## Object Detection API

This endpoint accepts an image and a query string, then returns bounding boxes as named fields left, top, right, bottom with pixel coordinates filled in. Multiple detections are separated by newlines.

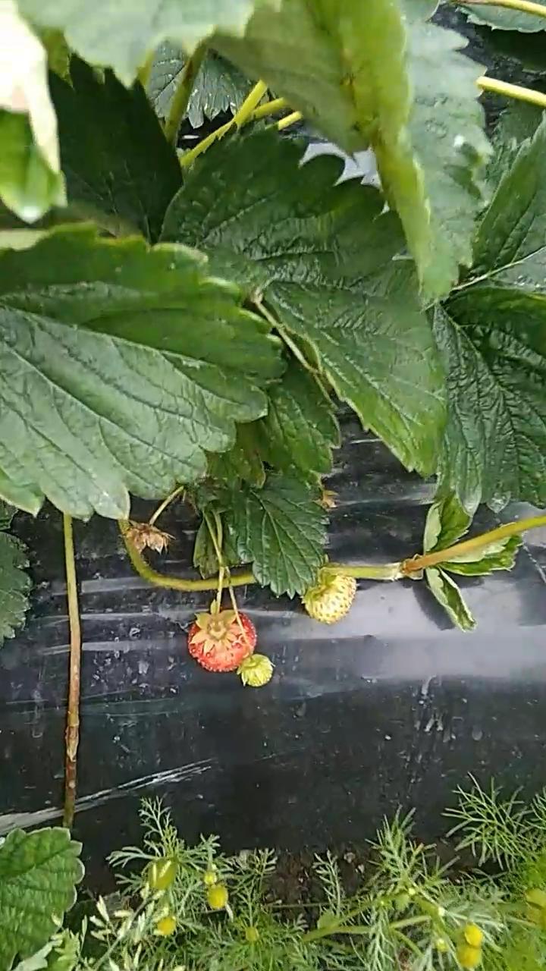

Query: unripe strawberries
left=242, top=650, right=274, bottom=692
left=300, top=570, right=362, bottom=632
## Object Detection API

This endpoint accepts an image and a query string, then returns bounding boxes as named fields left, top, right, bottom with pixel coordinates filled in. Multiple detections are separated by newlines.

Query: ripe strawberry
left=186, top=610, right=258, bottom=672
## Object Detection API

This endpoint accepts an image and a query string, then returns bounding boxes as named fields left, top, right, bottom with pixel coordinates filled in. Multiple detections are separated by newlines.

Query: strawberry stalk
left=206, top=569, right=233, bottom=639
